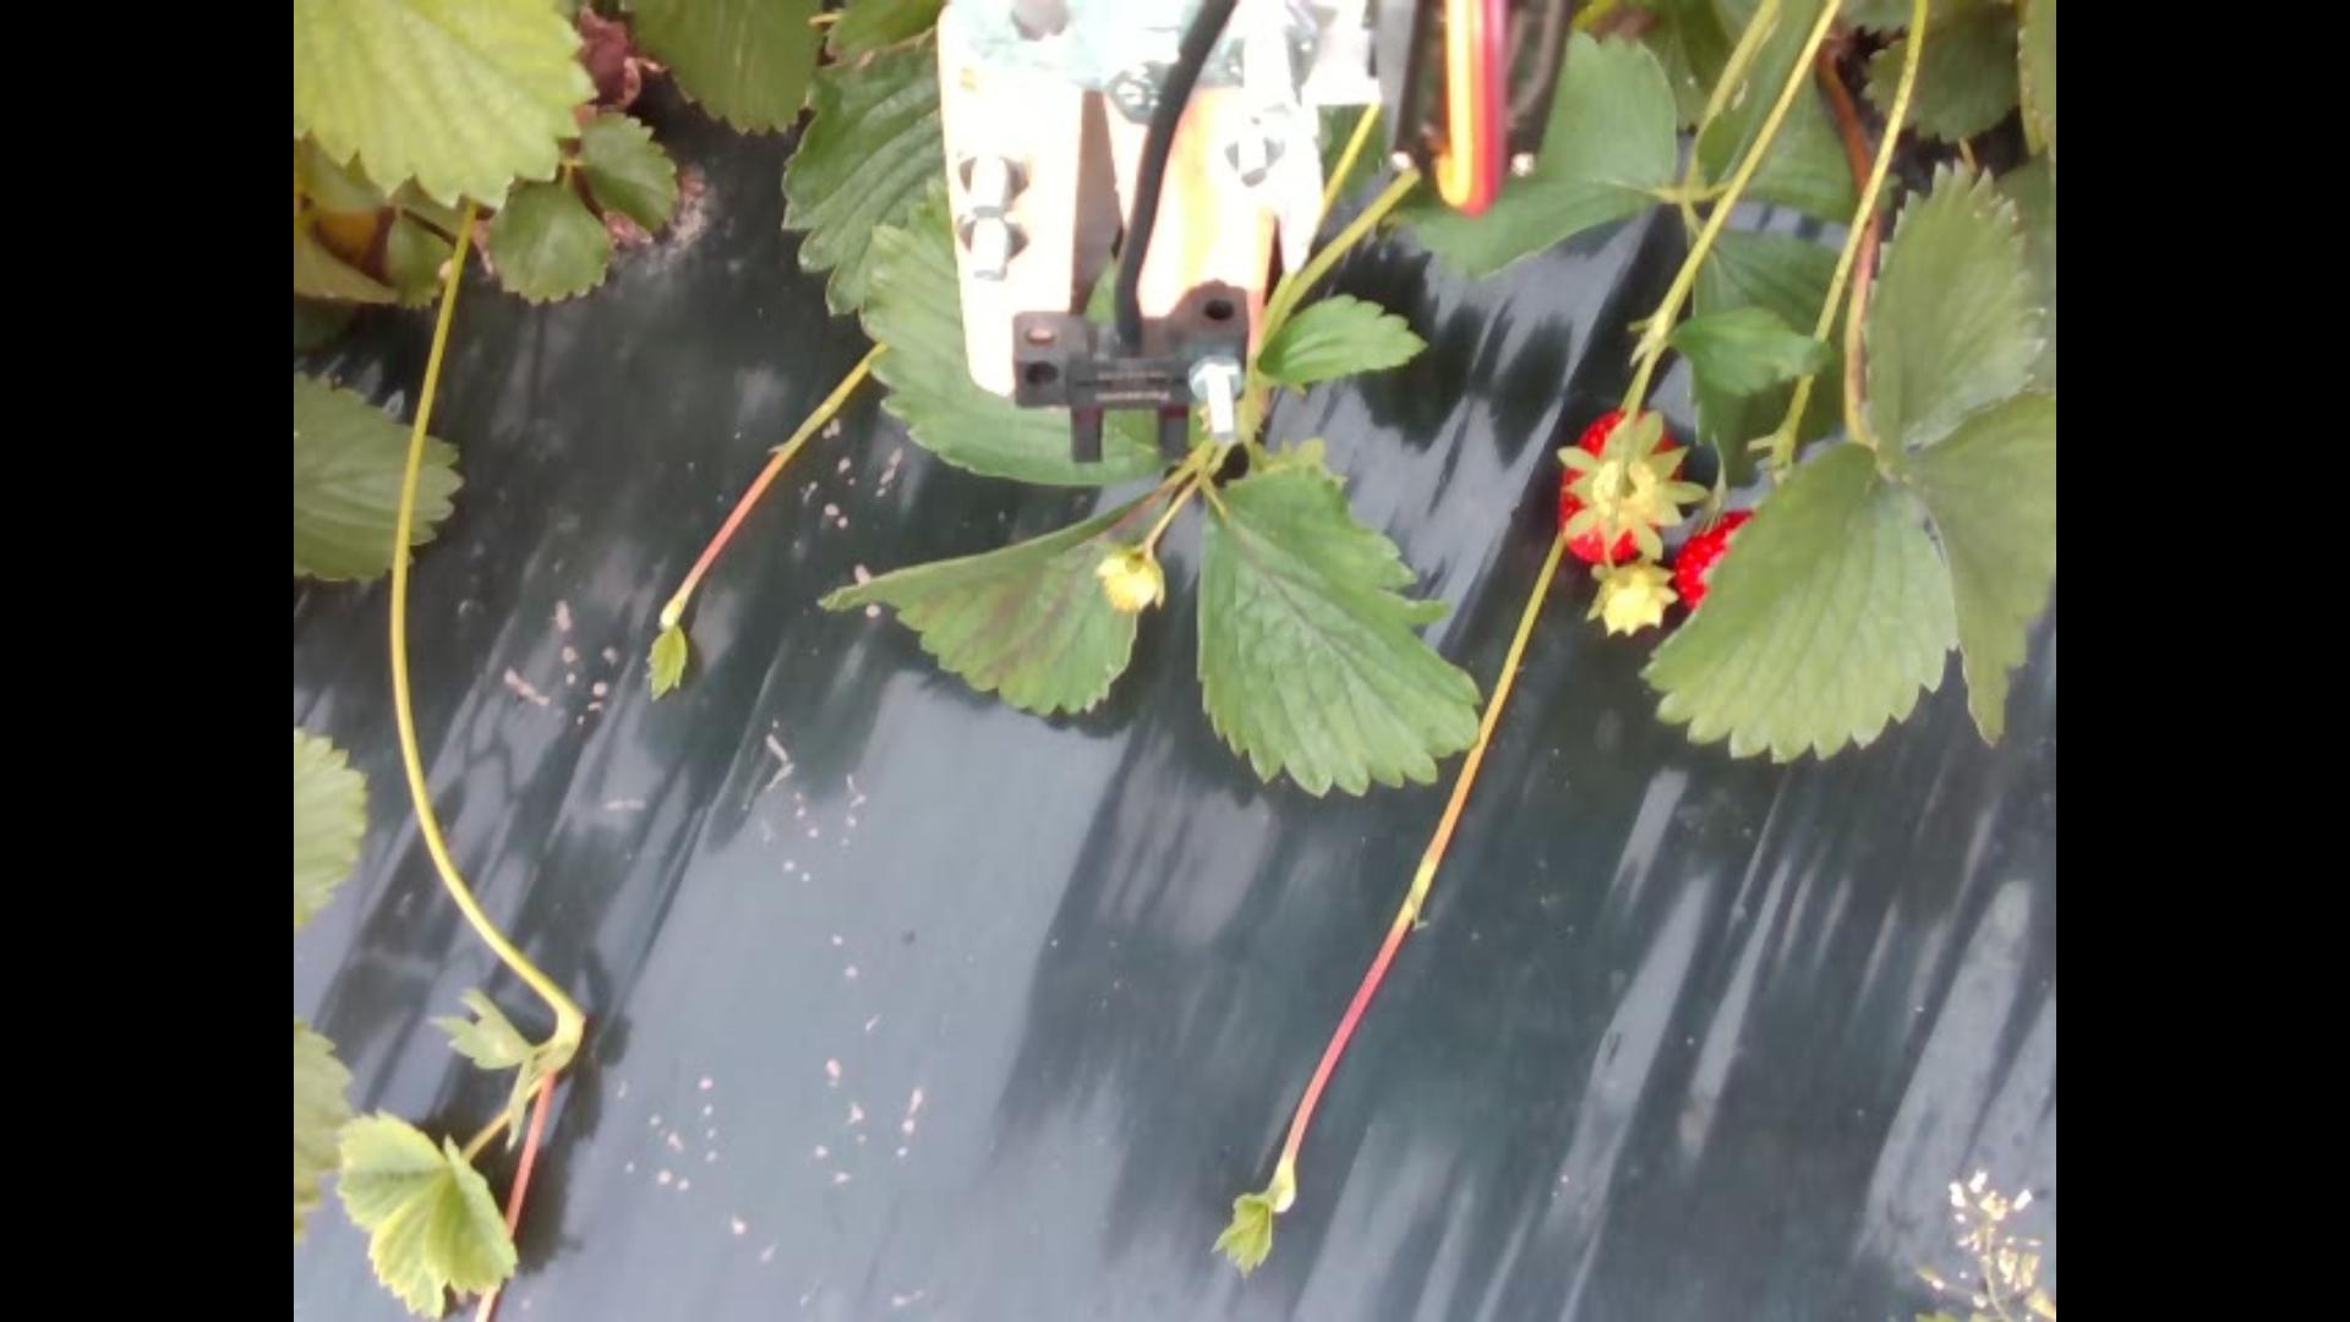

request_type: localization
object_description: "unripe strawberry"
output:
[1093,548,1173,622]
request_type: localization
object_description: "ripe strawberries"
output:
[1679,501,1819,629]
[1549,409,1688,570]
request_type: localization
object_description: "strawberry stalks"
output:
[1613,355,1644,514]
[1133,485,1183,571]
